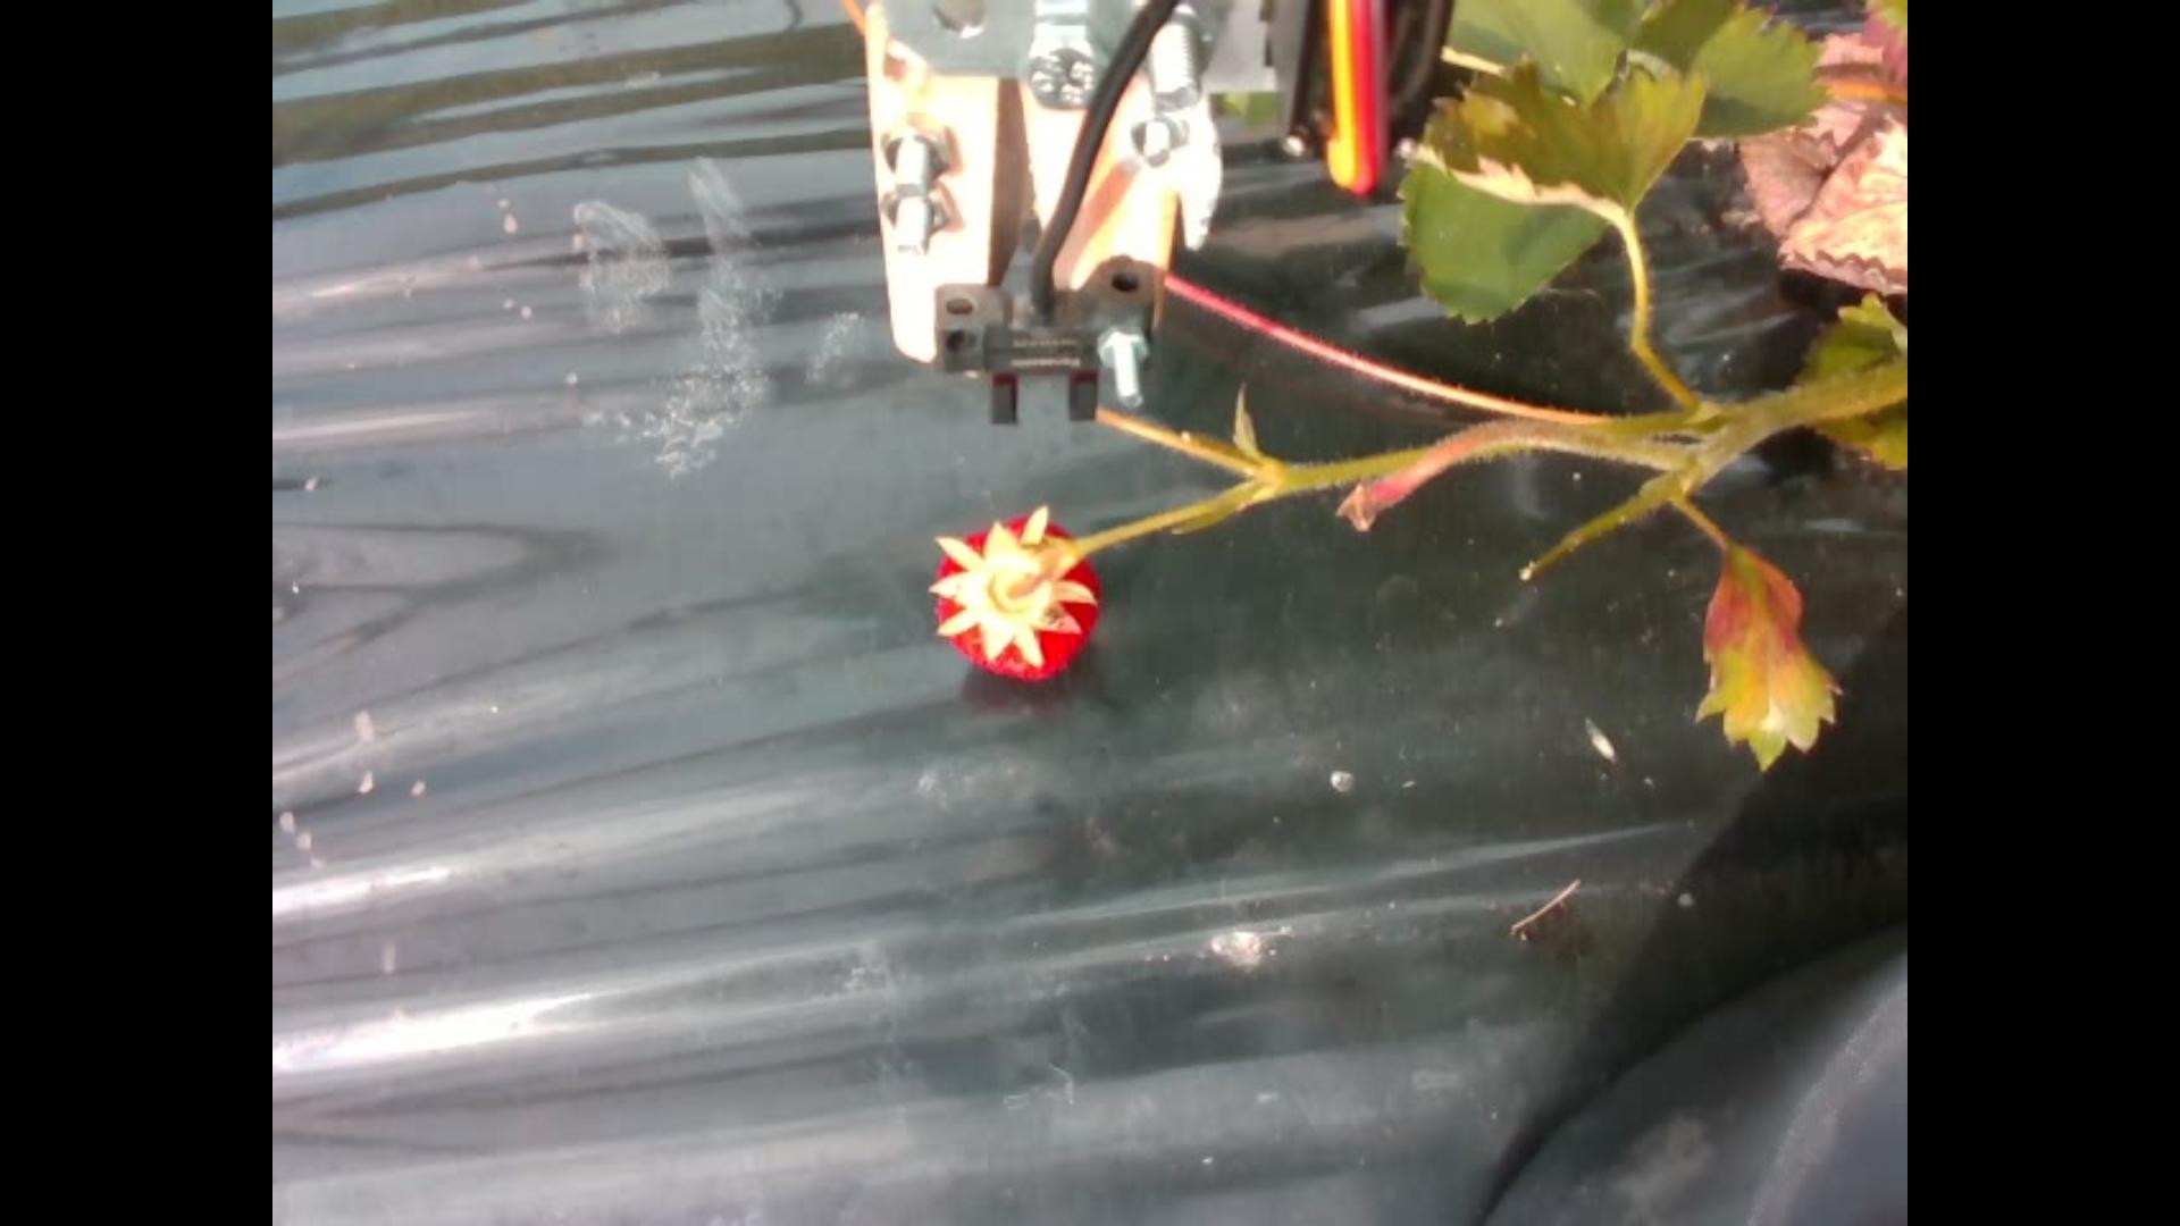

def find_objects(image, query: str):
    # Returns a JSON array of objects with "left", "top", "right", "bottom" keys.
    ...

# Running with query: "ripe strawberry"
[{"left": 919, "top": 495, "right": 1126, "bottom": 694}]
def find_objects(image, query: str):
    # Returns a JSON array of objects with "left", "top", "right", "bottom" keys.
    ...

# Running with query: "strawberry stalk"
[{"left": 1001, "top": 454, "right": 1271, "bottom": 613}]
